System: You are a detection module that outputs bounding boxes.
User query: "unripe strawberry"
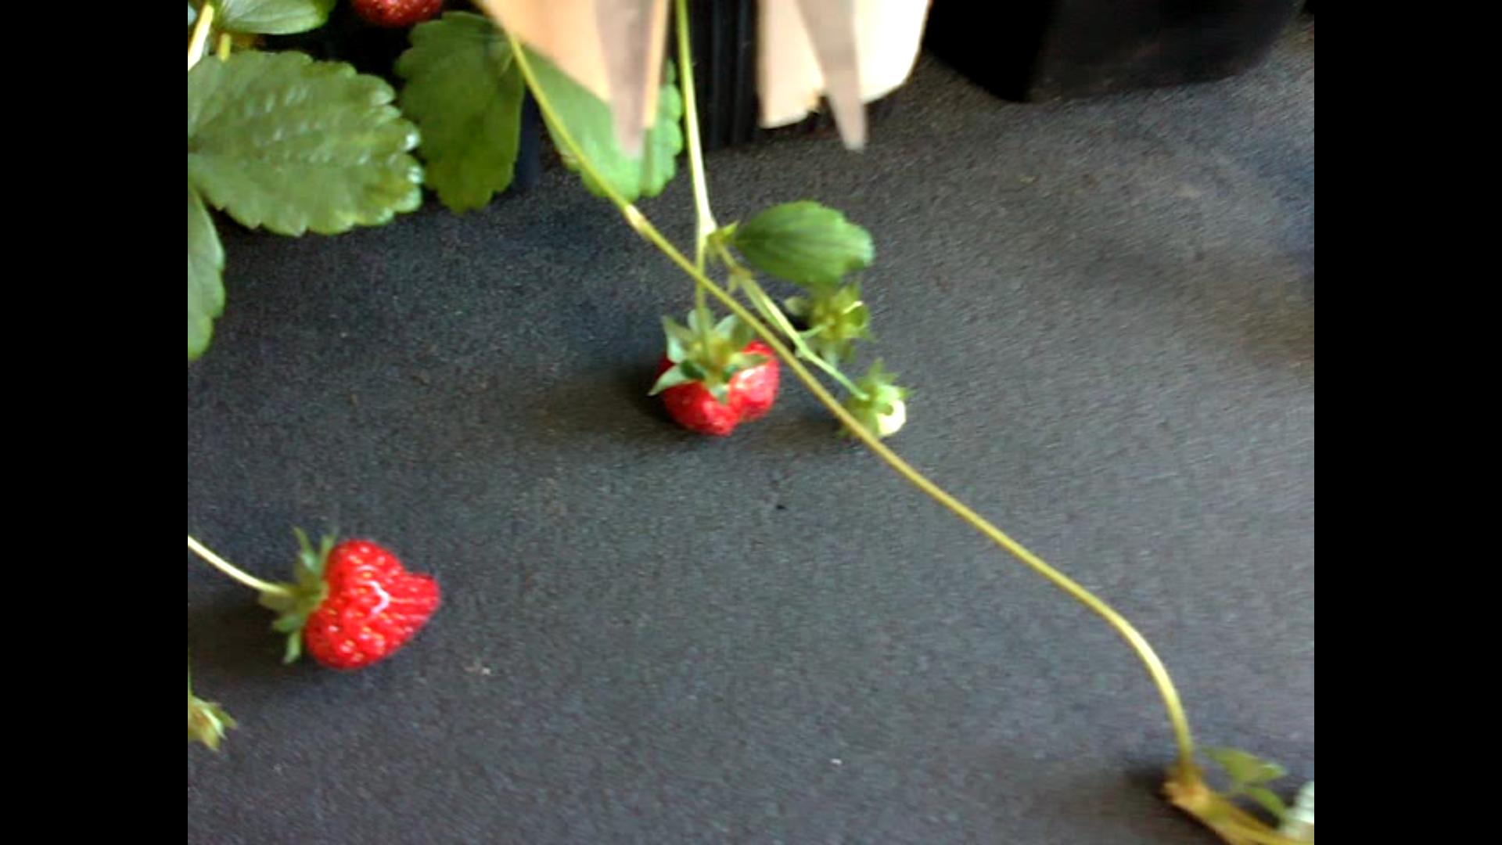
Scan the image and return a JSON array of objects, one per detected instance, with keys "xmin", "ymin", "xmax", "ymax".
[{"xmin": 849, "ymin": 374, "xmax": 925, "ymax": 444}]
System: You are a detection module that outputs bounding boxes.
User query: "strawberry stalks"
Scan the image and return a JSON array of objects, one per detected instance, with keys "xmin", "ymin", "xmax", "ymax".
[
  {"xmin": 674, "ymin": 238, "xmax": 730, "ymax": 379},
  {"xmin": 814, "ymin": 351, "xmax": 875, "ymax": 404},
  {"xmin": 184, "ymin": 524, "xmax": 339, "ymax": 627}
]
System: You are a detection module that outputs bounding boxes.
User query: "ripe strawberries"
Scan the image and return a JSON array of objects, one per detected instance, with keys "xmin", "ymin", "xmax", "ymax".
[
  {"xmin": 351, "ymin": 2, "xmax": 458, "ymax": 32},
  {"xmin": 633, "ymin": 307, "xmax": 798, "ymax": 430},
  {"xmin": 296, "ymin": 532, "xmax": 486, "ymax": 677}
]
